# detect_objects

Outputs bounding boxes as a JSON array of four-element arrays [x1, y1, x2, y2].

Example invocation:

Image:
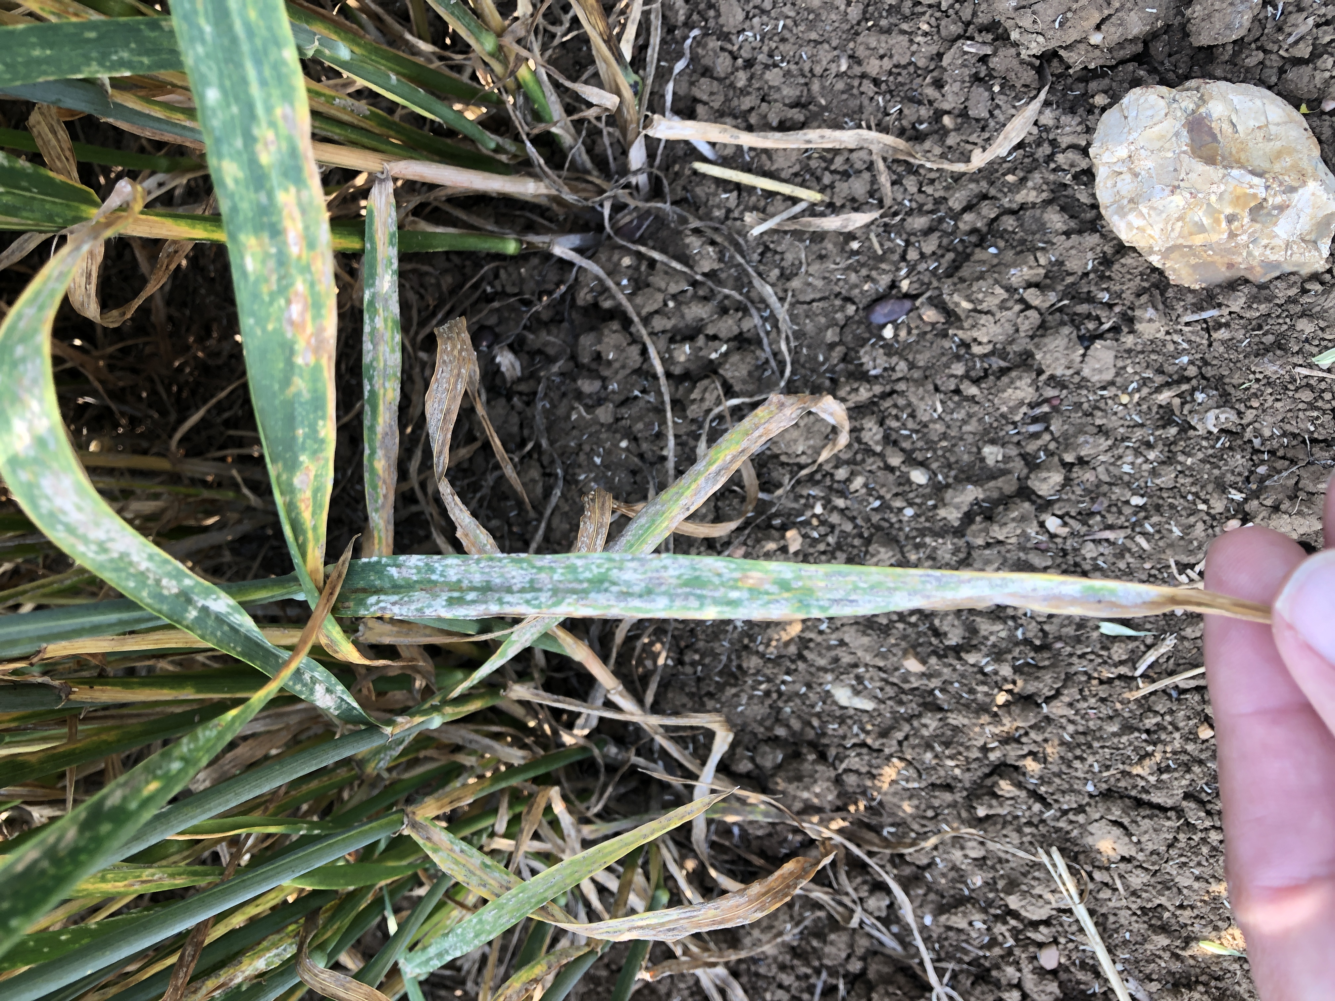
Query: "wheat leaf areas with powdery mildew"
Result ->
[[404, 825, 630, 984], [6, 230, 358, 718], [424, 282, 507, 548], [192, 913, 312, 994], [8, 705, 231, 882], [348, 527, 1204, 637], [335, 181, 411, 525], [170, 0, 387, 618]]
